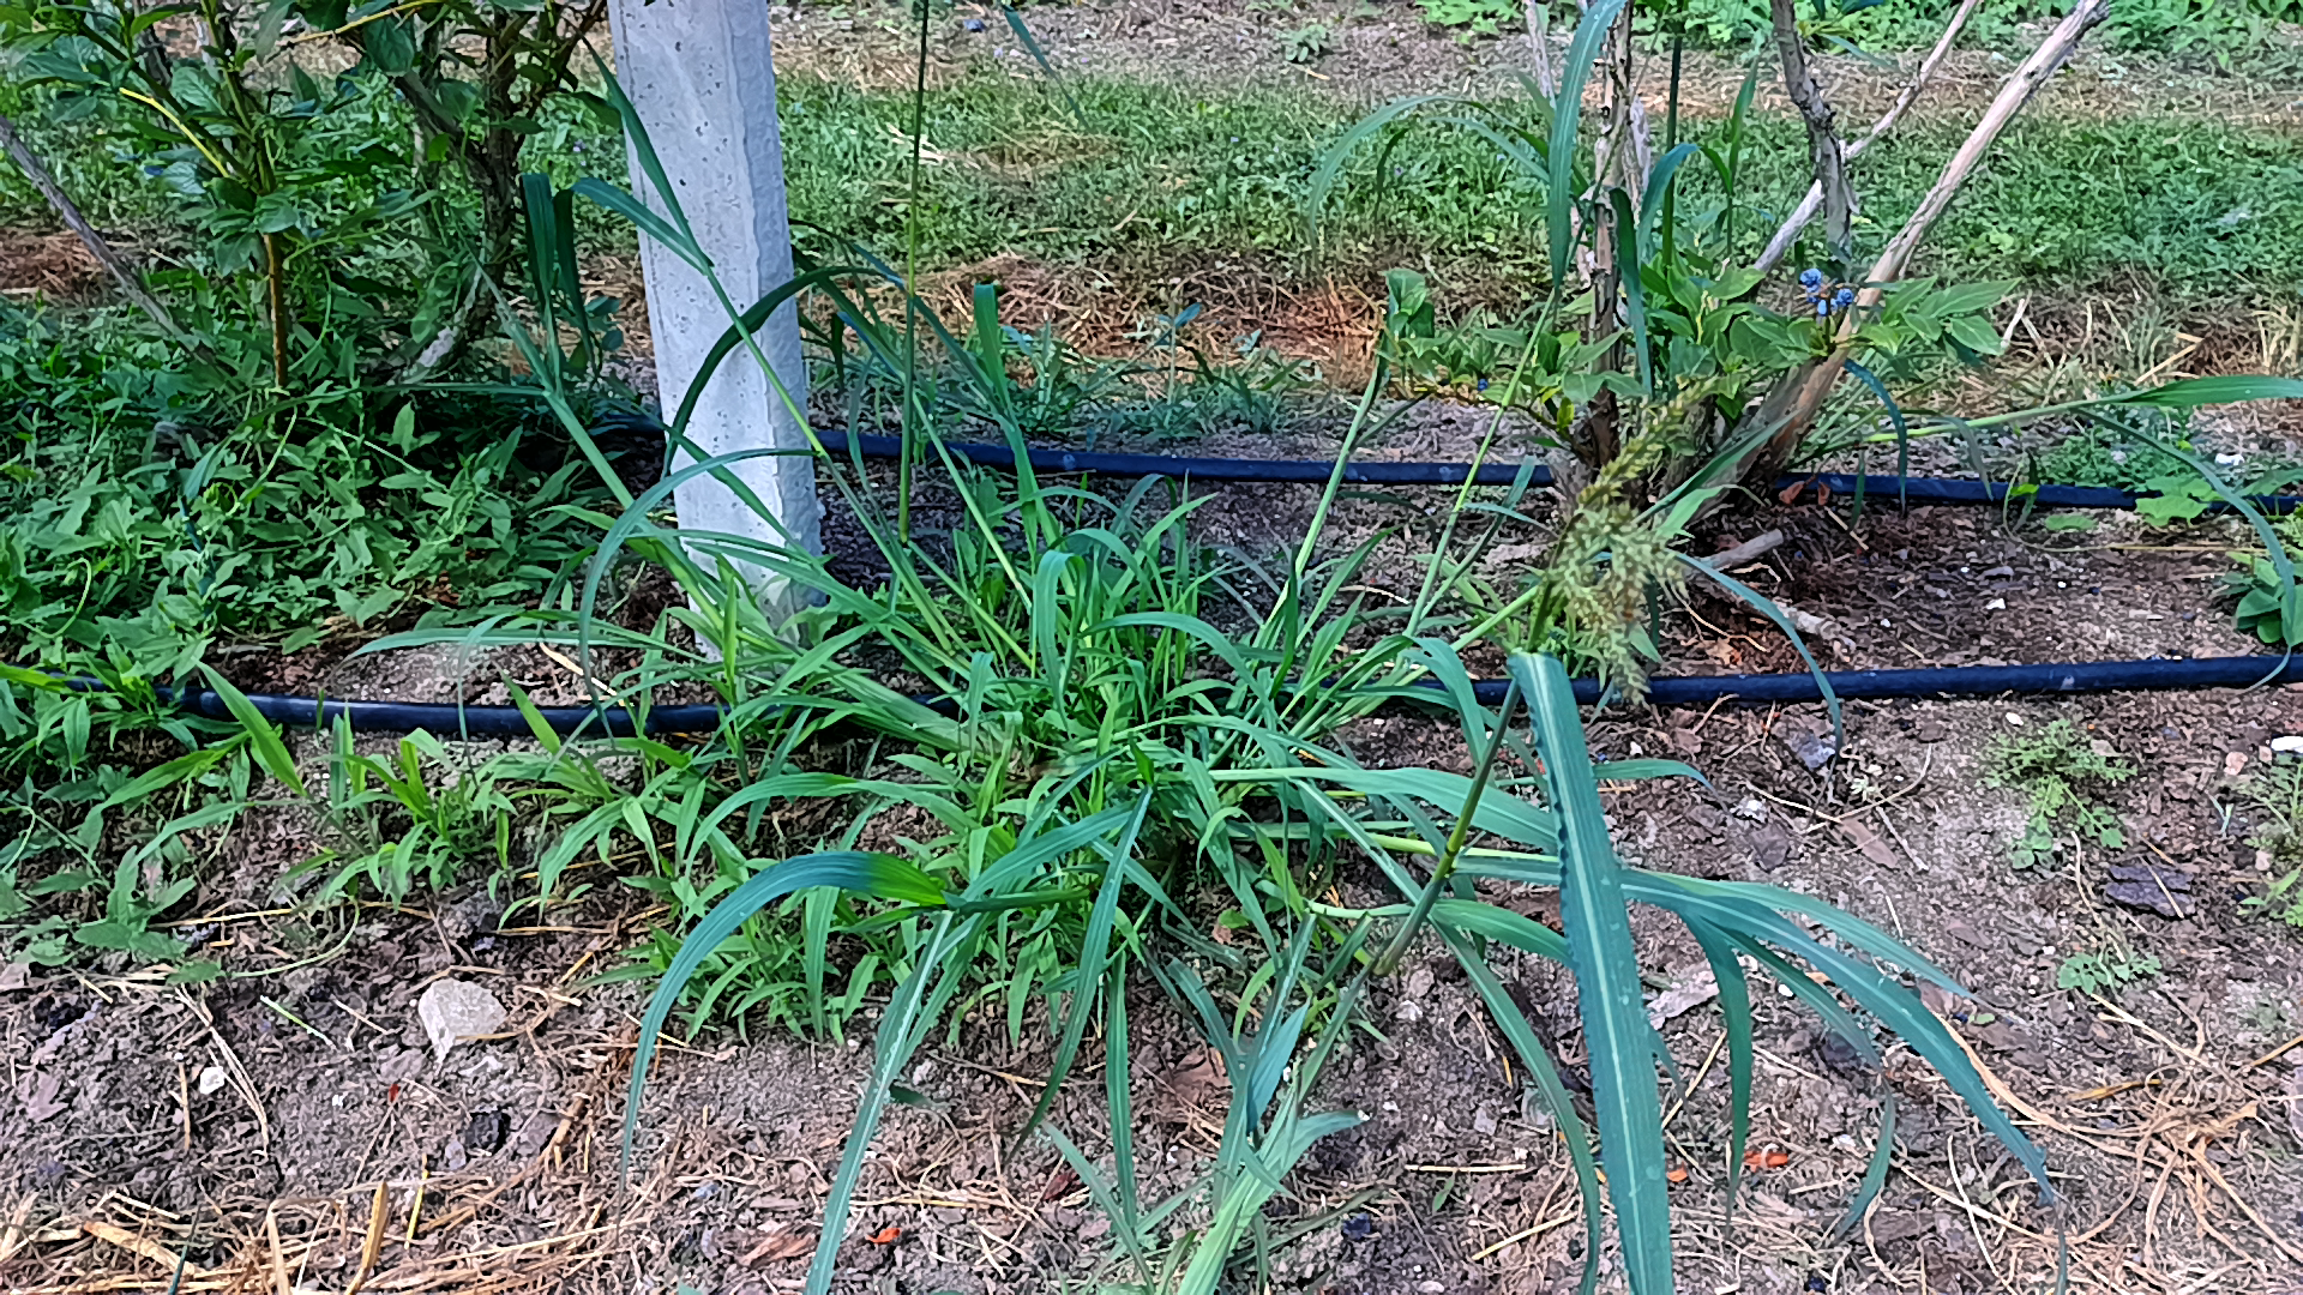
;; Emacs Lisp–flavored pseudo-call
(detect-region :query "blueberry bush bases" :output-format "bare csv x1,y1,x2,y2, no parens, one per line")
32,115,577,585
1495,239,1934,698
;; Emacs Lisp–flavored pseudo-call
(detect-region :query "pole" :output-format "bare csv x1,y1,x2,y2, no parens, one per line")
601,0,852,668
